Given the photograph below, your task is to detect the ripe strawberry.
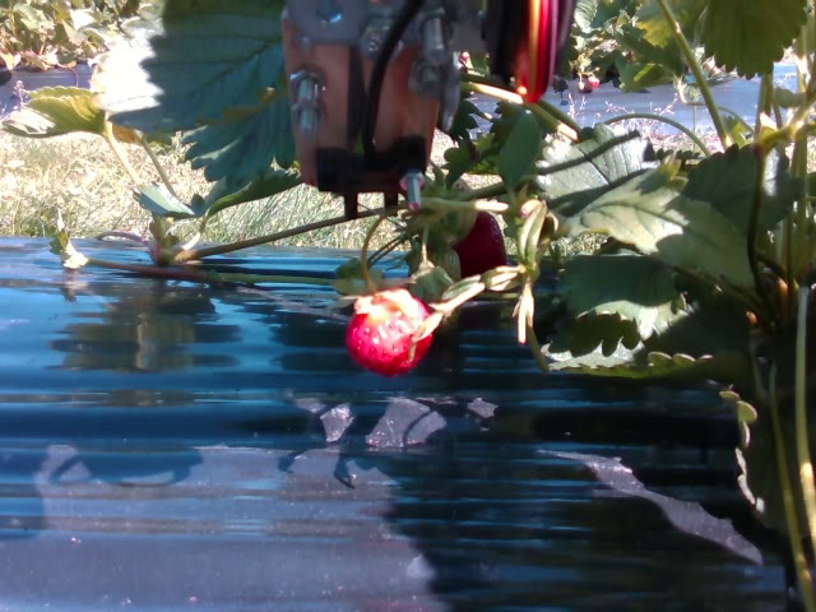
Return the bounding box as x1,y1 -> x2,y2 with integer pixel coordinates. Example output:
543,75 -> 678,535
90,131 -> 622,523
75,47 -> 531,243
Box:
344,289 -> 429,377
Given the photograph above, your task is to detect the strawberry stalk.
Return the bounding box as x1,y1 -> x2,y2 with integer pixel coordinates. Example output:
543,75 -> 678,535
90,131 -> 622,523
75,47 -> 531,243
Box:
355,208 -> 395,326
